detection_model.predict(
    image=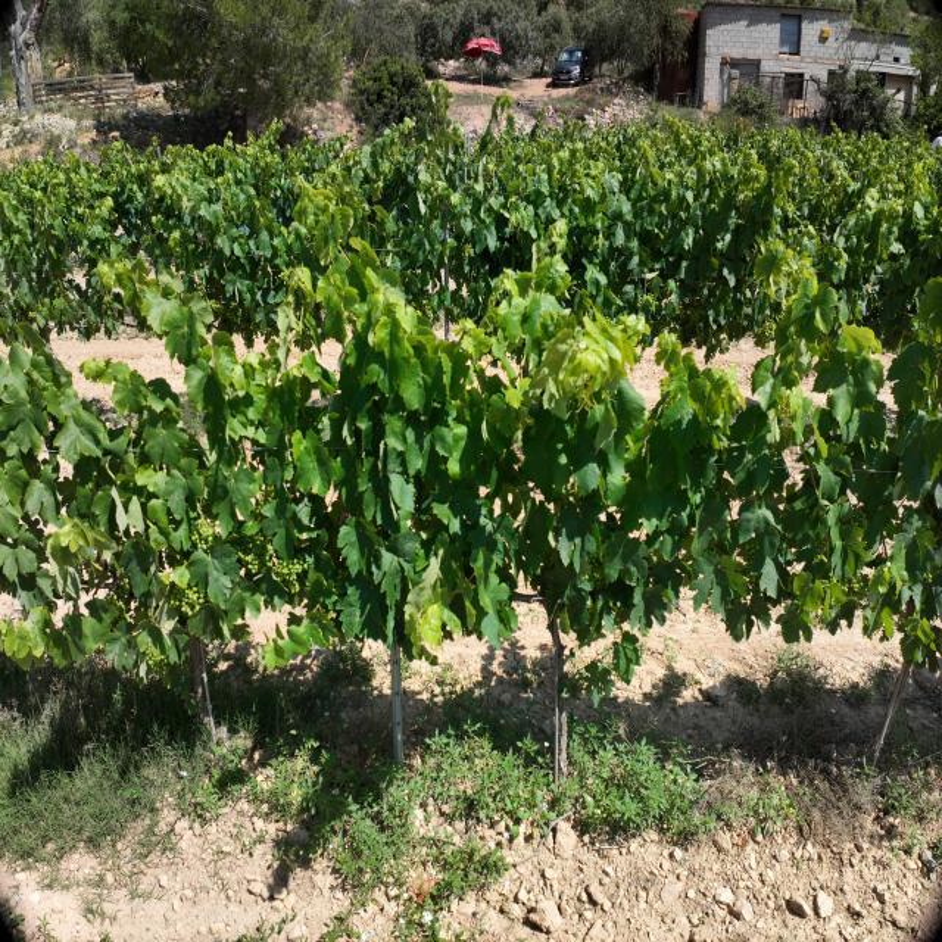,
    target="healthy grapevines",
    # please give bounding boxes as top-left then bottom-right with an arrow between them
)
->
369,278 -> 762,839
0,278 -> 374,782
748,285 -> 942,790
